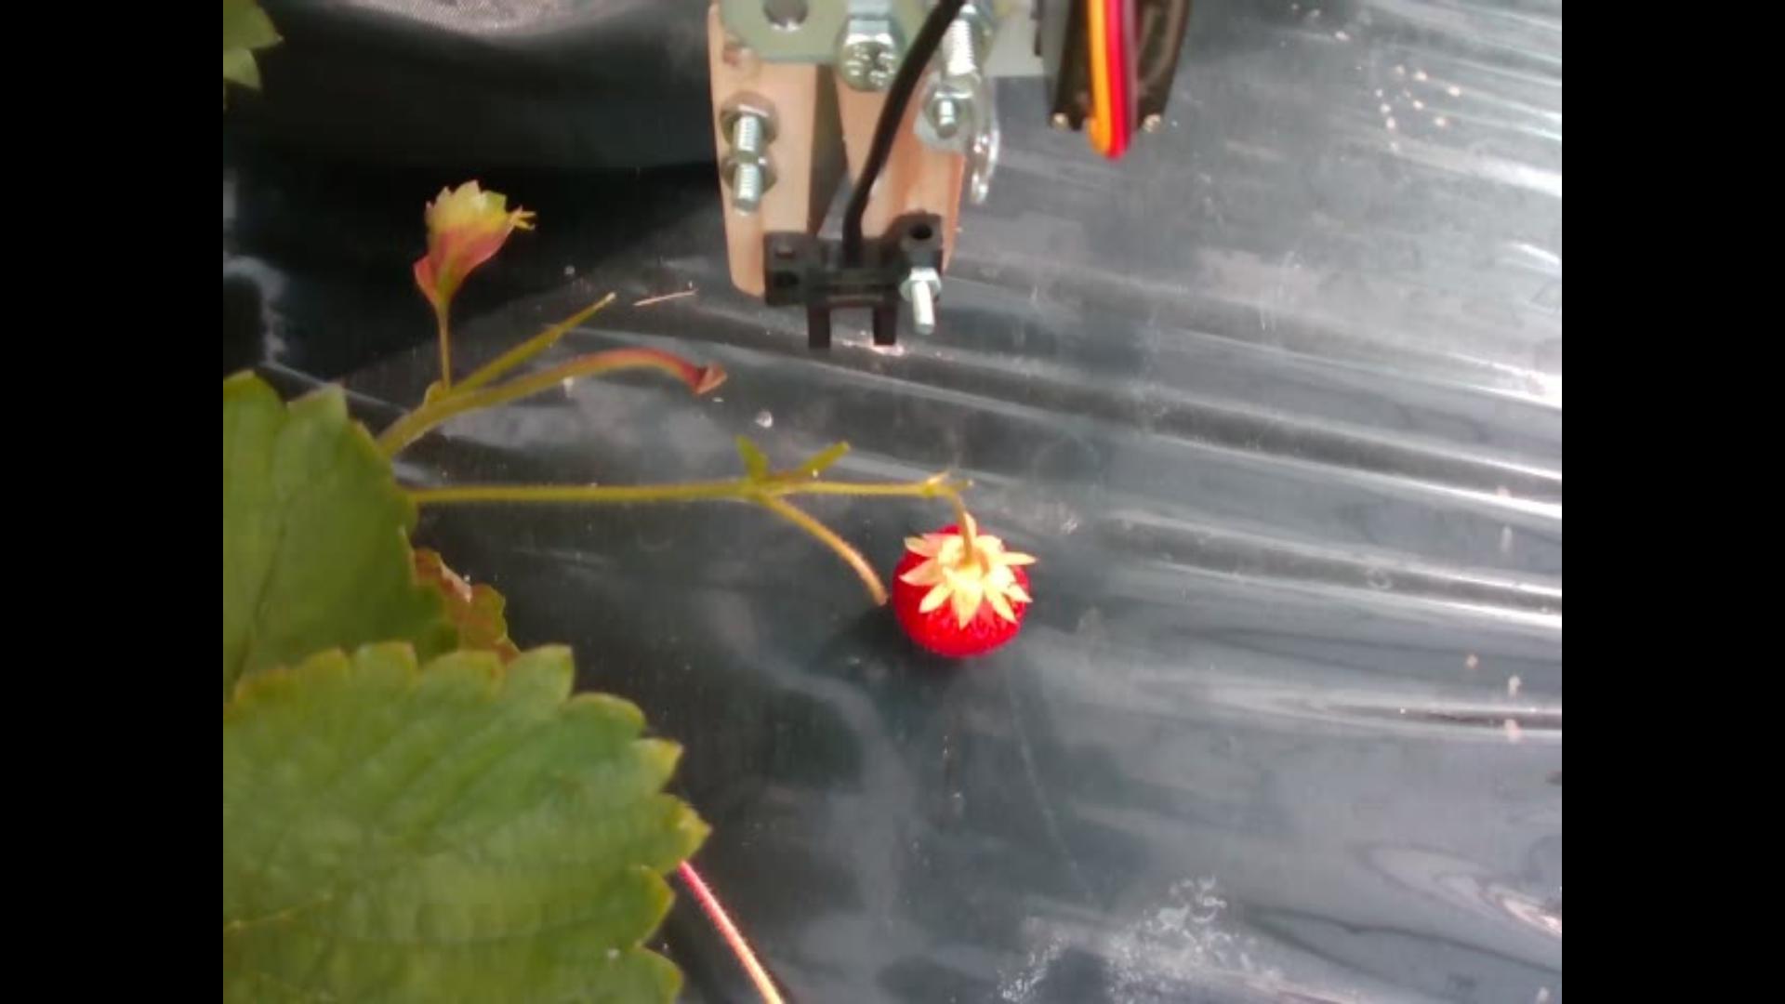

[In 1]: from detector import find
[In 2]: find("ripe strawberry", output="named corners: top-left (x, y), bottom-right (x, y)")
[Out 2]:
top-left (895, 502), bottom-right (1062, 661)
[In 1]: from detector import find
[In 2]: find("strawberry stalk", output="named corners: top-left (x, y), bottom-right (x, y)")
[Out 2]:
top-left (812, 461), bottom-right (1004, 562)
